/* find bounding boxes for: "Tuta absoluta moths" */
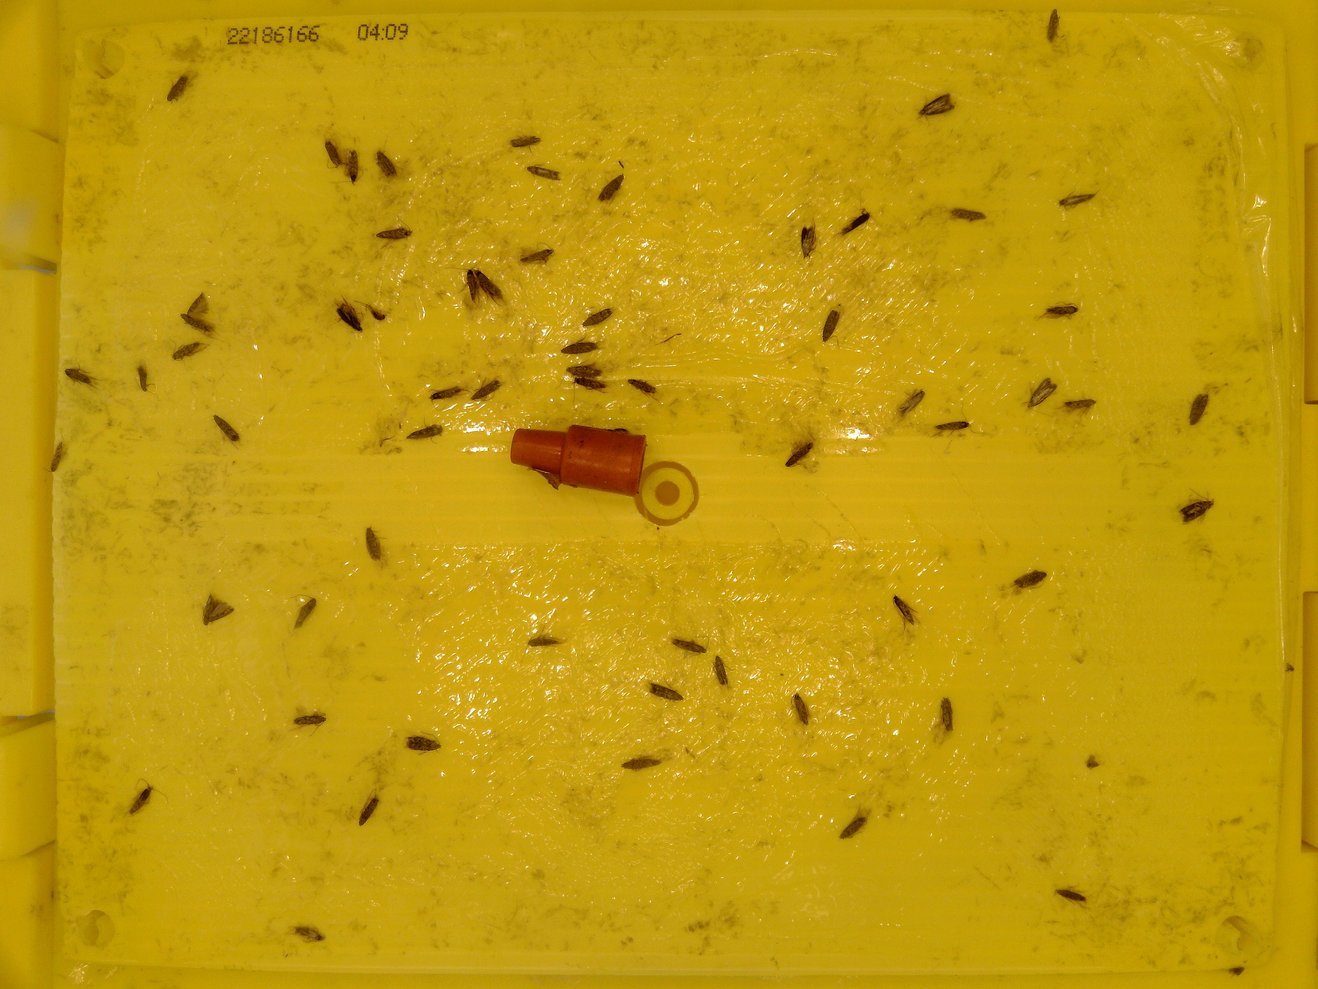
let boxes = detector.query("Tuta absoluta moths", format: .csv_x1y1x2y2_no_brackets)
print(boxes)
166,72,193,102
892,594,918,629
560,338,599,355
1046,8,1060,42
172,341,206,361
563,361,606,376
525,632,561,647
136,360,151,391
648,681,683,702
406,423,443,440
933,419,970,436
799,223,816,258
567,377,607,391
839,807,869,839
358,793,379,825
791,692,810,725
364,525,383,561
465,267,478,306
1041,302,1077,318
65,366,96,387
625,374,656,396
375,225,411,240
293,596,315,628
597,172,624,201
49,440,66,471
202,592,233,624
429,385,462,401
470,377,500,401
375,149,397,179
180,291,214,336
212,413,240,443
128,783,152,815
619,752,667,773
1062,397,1095,413
526,164,560,181
509,134,541,149
335,298,362,332
290,922,327,946
293,709,326,727
895,388,924,418
478,267,501,301
712,654,729,686
1026,376,1056,408
784,440,813,468
519,246,553,265
938,696,953,732
406,734,440,752
671,636,706,655
324,138,342,168
840,209,870,235
1058,191,1096,208
950,207,985,222
1188,392,1208,424
1178,497,1213,522
345,147,362,185
1012,568,1046,591
581,307,612,327
821,307,840,341
1053,884,1091,904
919,92,954,116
